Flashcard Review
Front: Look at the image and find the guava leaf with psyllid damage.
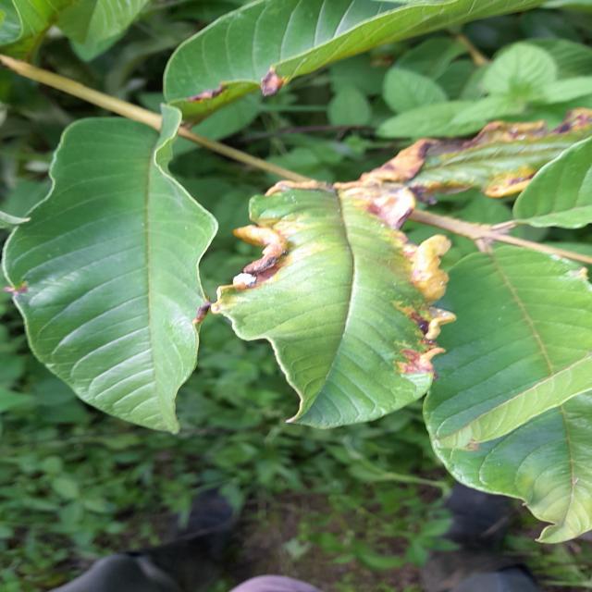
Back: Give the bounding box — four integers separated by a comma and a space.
214, 165, 465, 440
